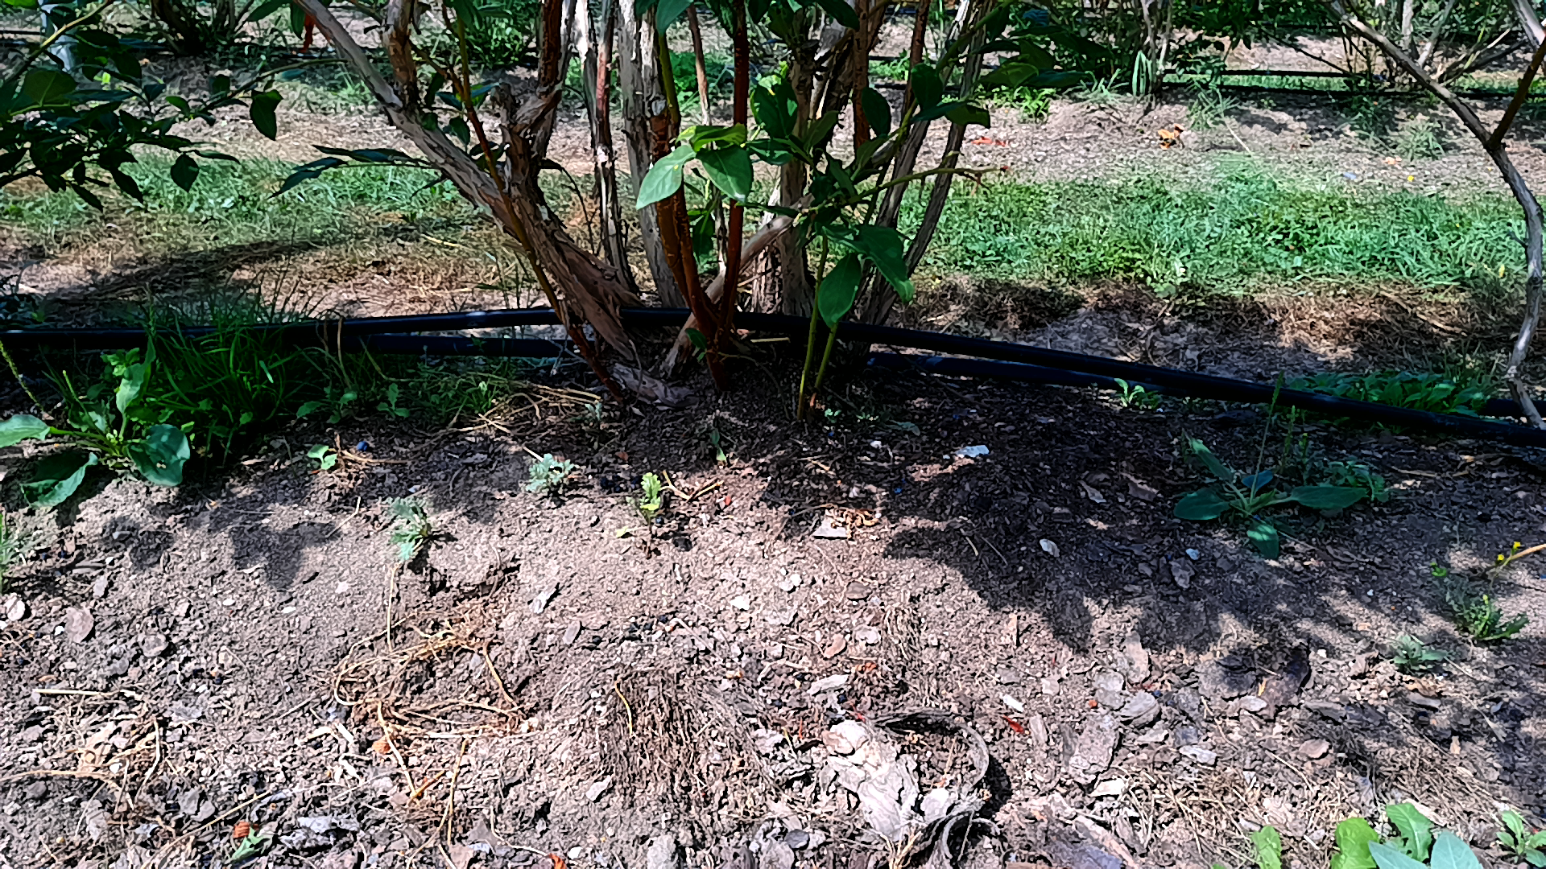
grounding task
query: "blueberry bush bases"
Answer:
[1343,23,1476,115]
[147,1,258,68]
[429,81,991,468]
